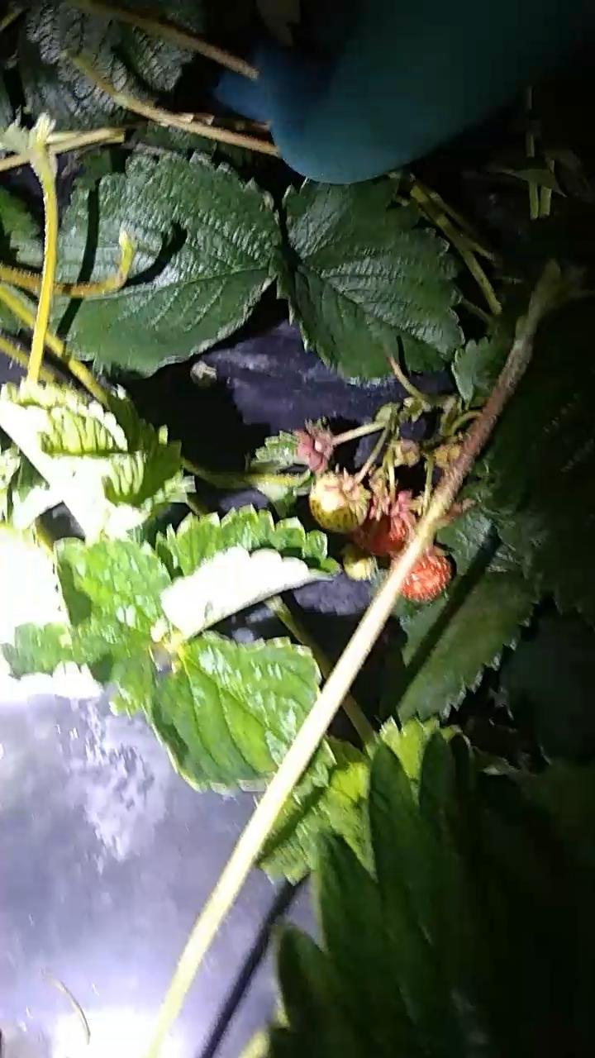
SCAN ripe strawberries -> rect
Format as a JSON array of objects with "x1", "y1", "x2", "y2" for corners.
[
  {"x1": 390, "y1": 544, "x2": 454, "y2": 609},
  {"x1": 351, "y1": 488, "x2": 415, "y2": 559}
]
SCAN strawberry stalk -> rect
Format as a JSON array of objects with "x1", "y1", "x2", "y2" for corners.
[{"x1": 347, "y1": 426, "x2": 380, "y2": 492}]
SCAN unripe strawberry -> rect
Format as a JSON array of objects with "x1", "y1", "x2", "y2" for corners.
[{"x1": 311, "y1": 474, "x2": 370, "y2": 532}]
